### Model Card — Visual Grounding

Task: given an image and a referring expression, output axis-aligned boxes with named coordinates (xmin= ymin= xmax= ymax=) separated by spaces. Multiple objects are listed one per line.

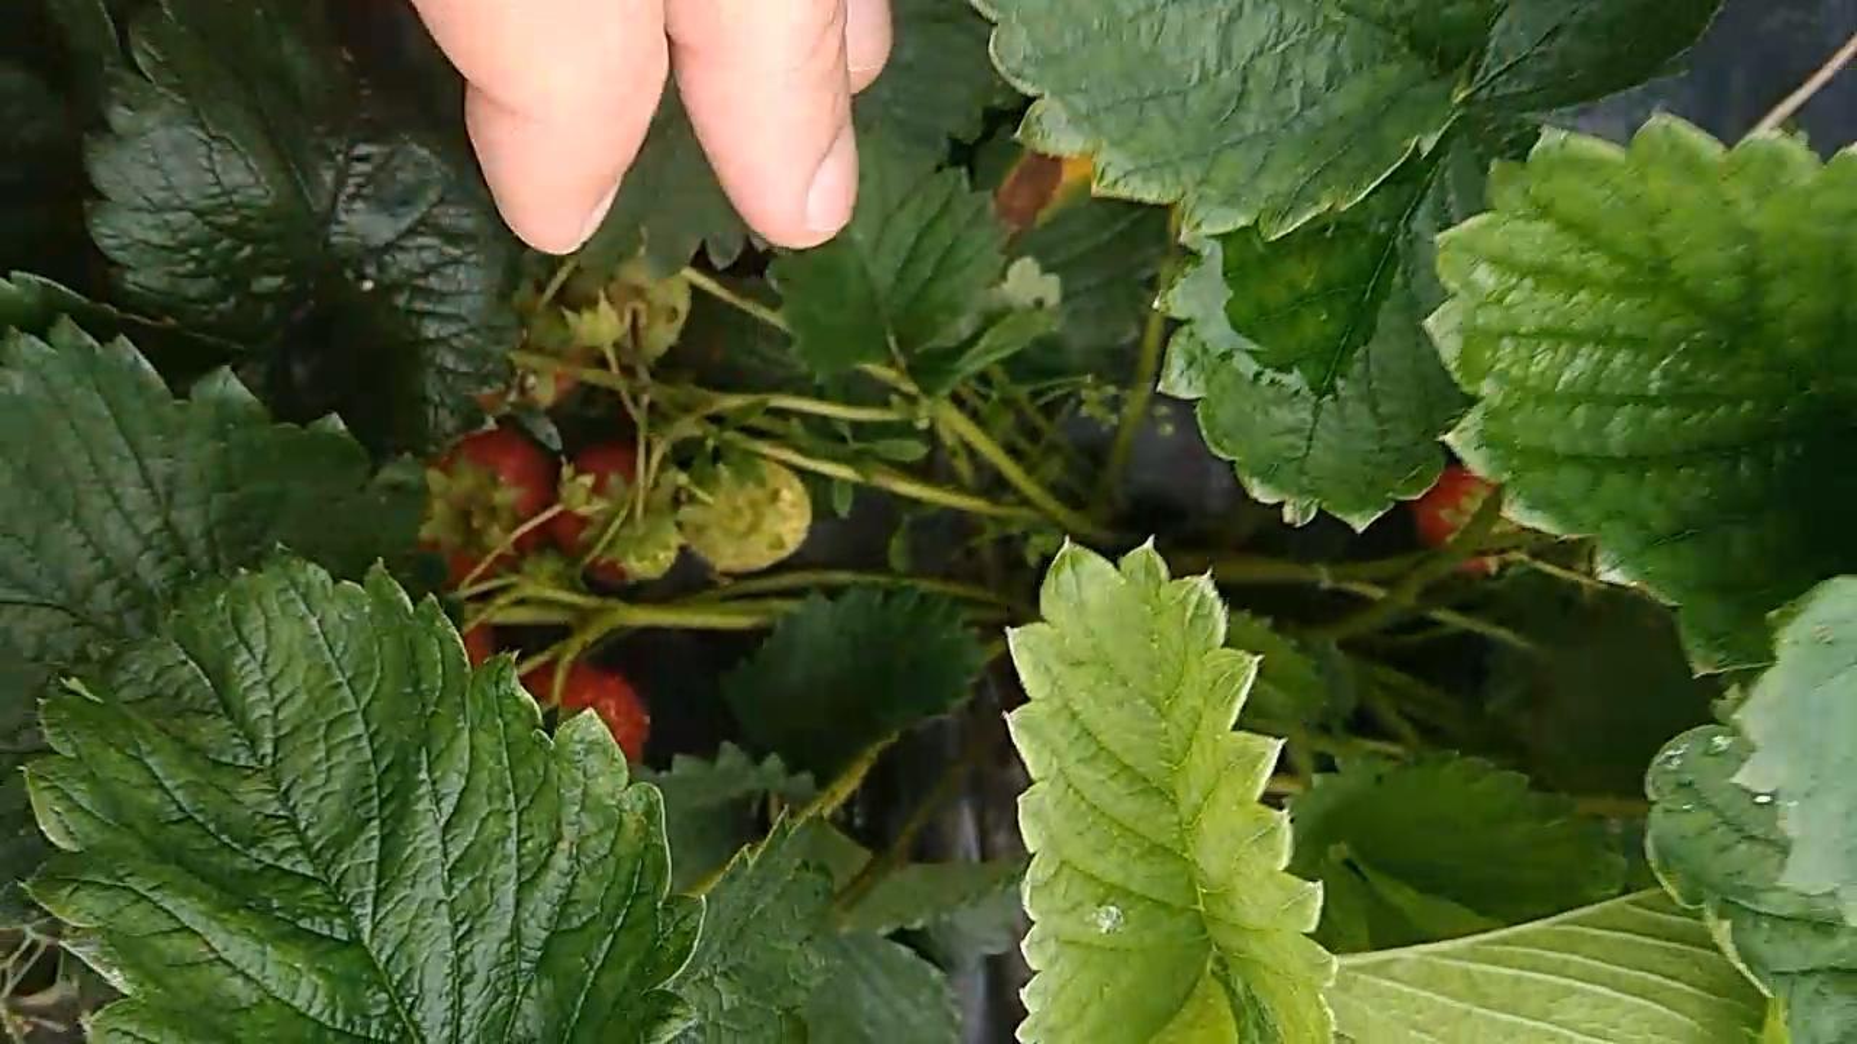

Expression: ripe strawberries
xmin=537 ymin=658 xmax=660 ymax=758
xmin=560 ymin=447 xmax=680 ymax=586
xmin=417 ymin=586 xmax=516 ymax=703
xmin=423 ymin=419 xmax=556 ymax=560
xmin=1407 ymin=447 xmax=1533 ymax=589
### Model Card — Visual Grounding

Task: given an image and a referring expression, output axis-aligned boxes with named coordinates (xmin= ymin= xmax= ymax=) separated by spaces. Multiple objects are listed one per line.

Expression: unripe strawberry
xmin=678 ymin=450 xmax=819 ymax=574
